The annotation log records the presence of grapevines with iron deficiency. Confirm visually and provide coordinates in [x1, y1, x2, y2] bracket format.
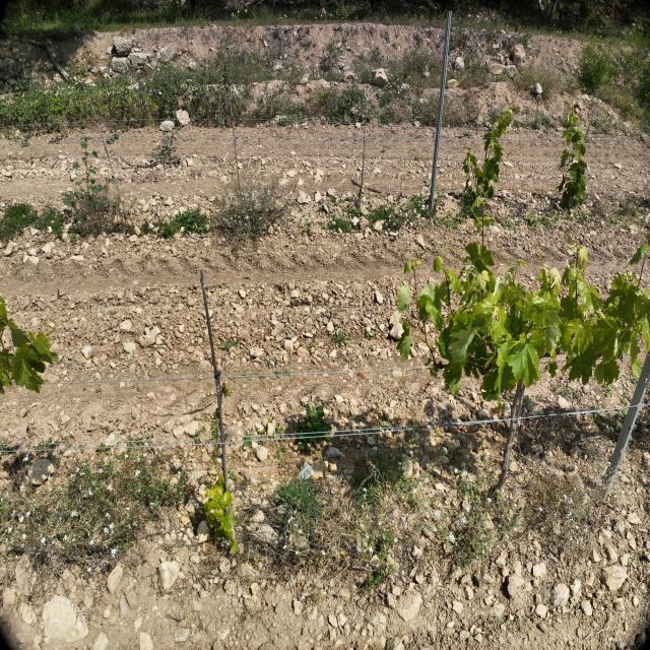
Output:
[186, 456, 248, 560]
[386, 234, 650, 503]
